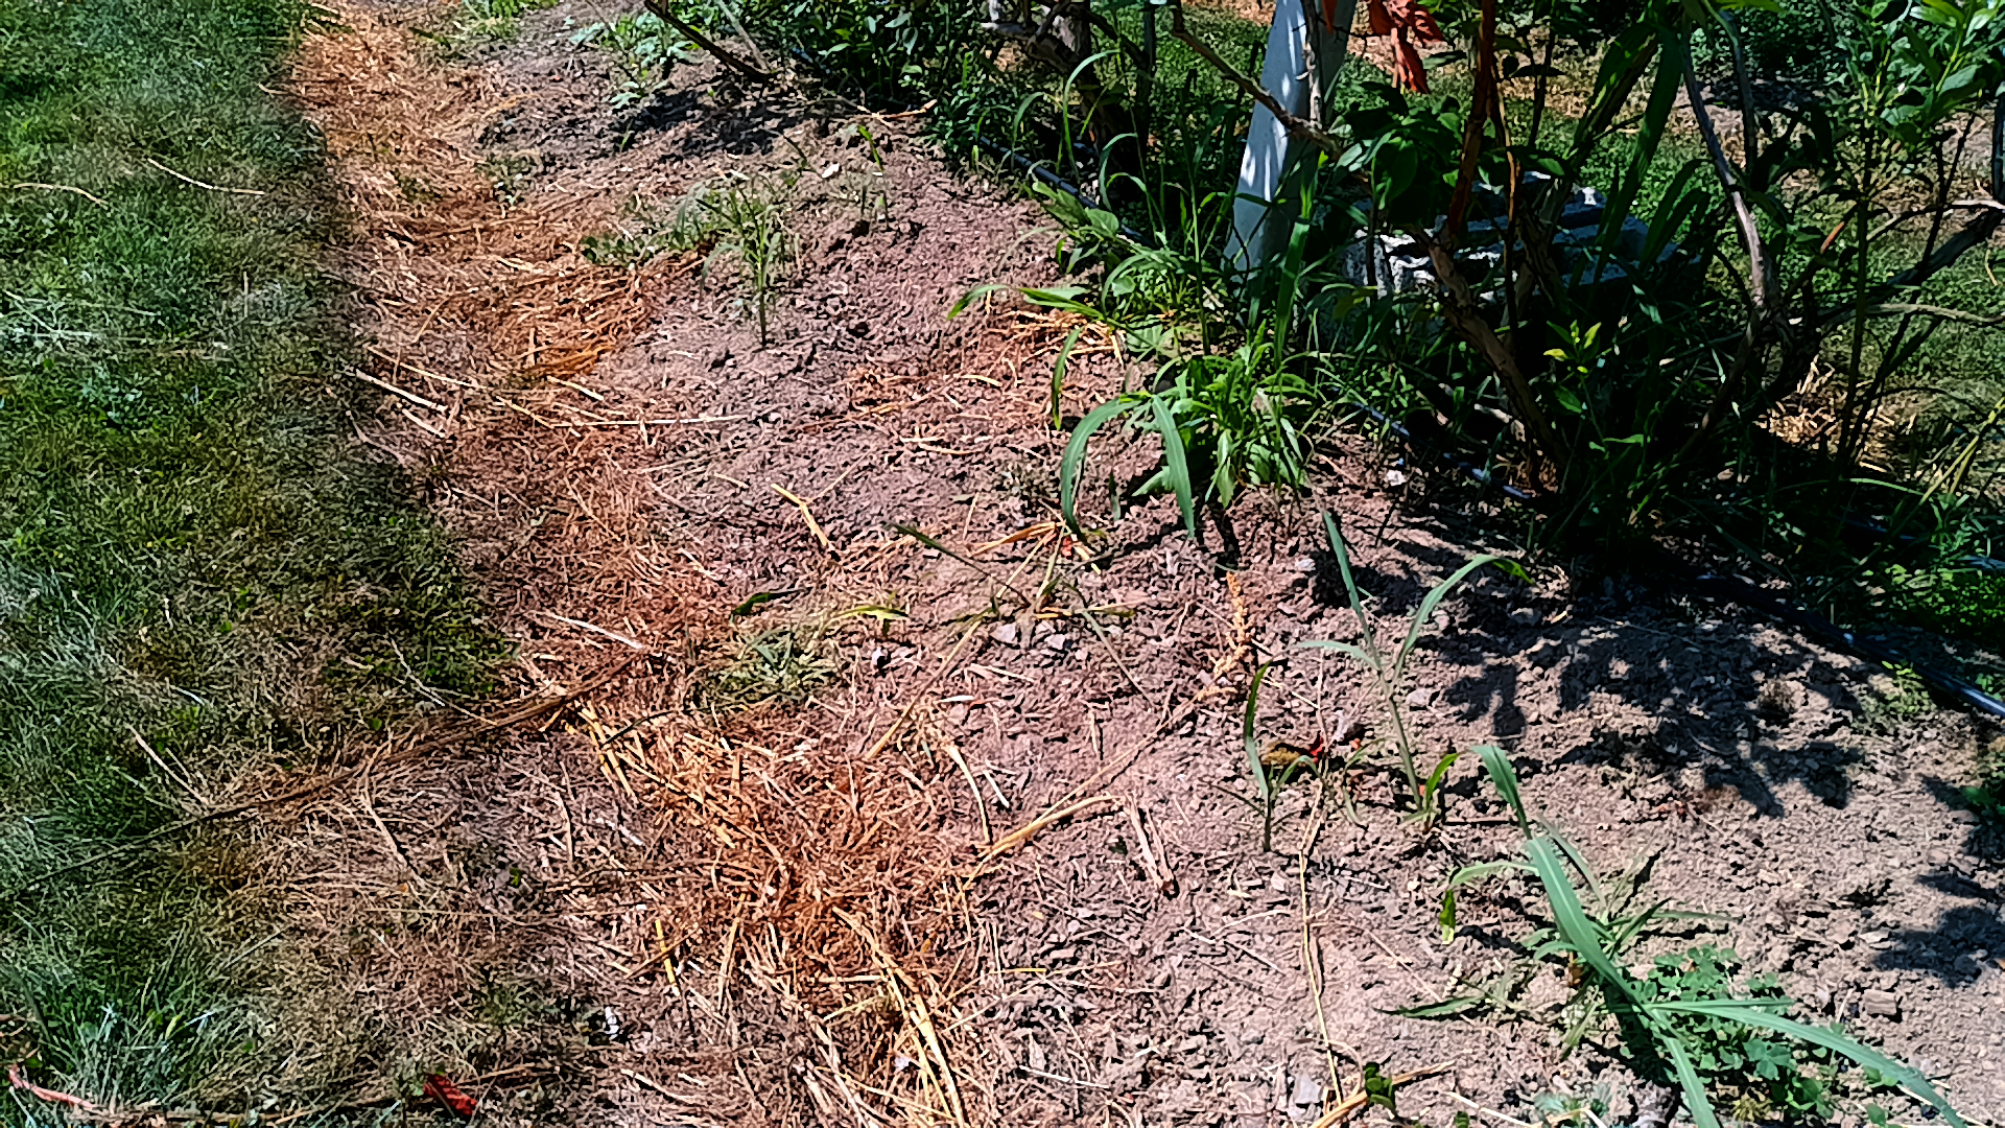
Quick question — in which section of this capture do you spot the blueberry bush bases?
[988,8,1174,242]
[1443,284,1866,598]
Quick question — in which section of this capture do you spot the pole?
[1201,0,1367,324]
